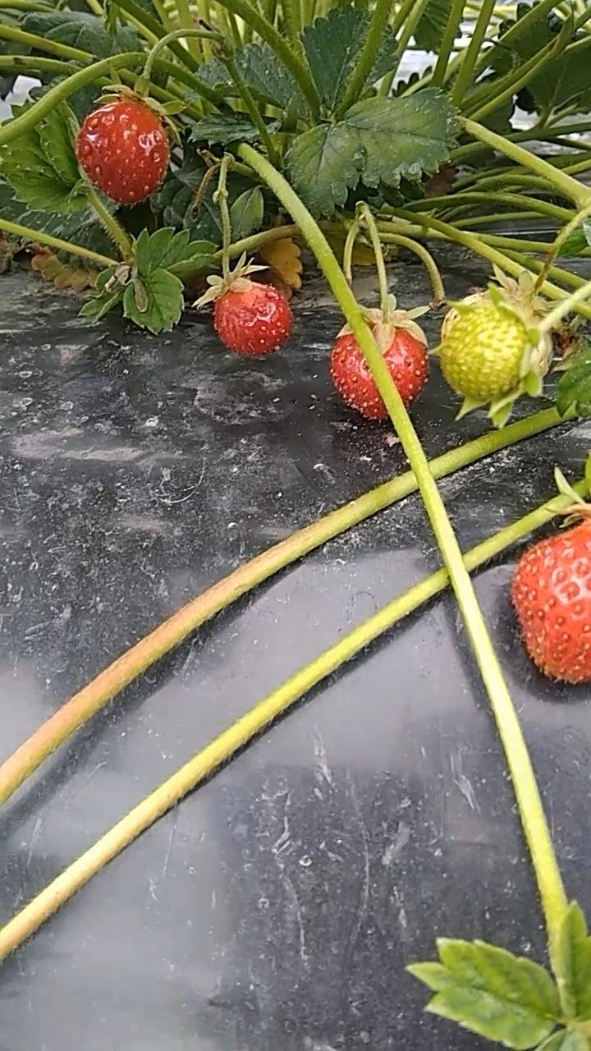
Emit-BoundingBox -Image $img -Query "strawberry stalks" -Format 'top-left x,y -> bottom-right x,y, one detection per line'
362,210 -> 395,351
514,209 -> 579,302
116,25 -> 229,122
205,179 -> 253,298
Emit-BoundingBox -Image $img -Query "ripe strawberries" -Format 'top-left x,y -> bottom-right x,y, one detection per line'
213,279 -> 289,358
330,318 -> 422,422
76,96 -> 195,203
515,515 -> 591,684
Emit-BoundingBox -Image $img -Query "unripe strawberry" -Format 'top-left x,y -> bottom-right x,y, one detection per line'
440,285 -> 548,396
